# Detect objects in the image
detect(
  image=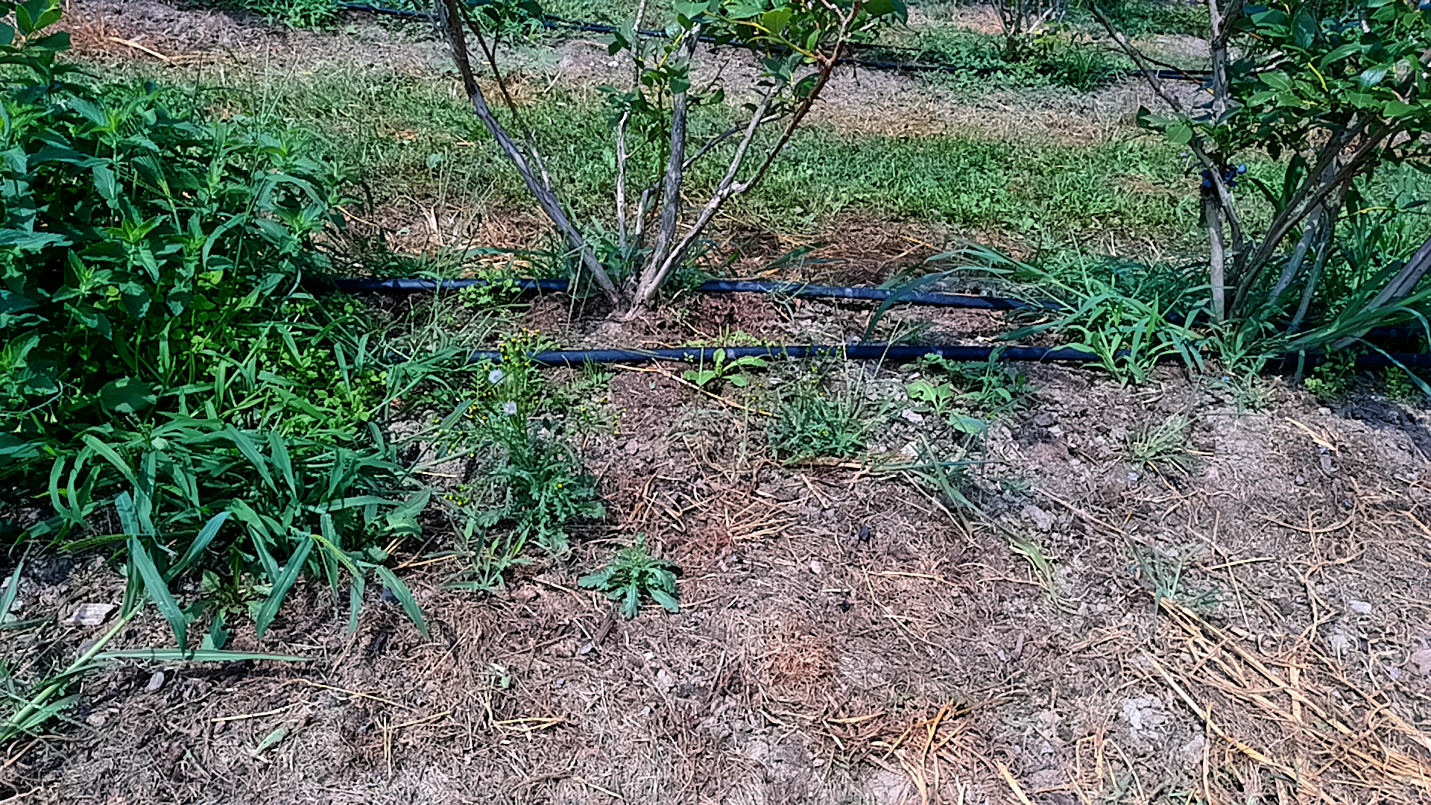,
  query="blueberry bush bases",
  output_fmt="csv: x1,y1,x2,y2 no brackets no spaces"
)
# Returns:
1143,180,1415,408
469,124,787,368
975,12,1067,78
